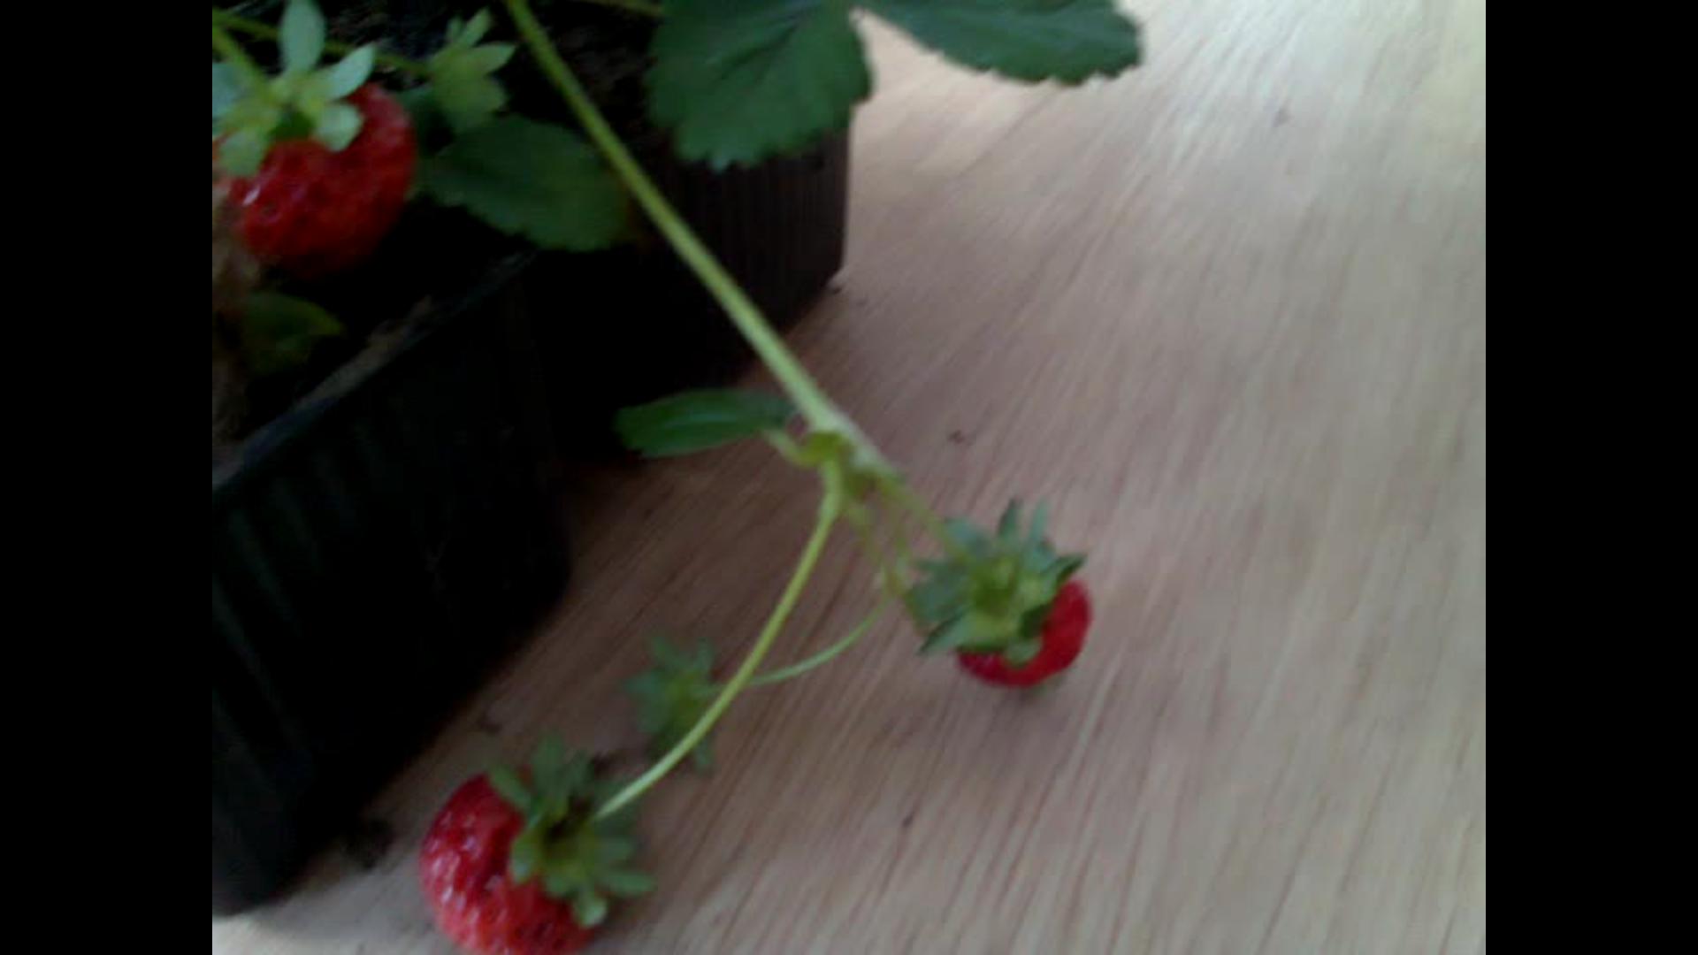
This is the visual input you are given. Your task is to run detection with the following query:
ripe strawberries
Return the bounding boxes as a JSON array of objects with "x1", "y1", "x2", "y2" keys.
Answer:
[
  {"x1": 398, "y1": 774, "x2": 675, "y2": 955},
  {"x1": 232, "y1": 50, "x2": 414, "y2": 239},
  {"x1": 937, "y1": 554, "x2": 1131, "y2": 684}
]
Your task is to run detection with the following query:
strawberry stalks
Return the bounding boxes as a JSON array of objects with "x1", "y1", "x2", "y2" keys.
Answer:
[
  {"x1": 182, "y1": 1, "x2": 369, "y2": 149},
  {"x1": 558, "y1": 710, "x2": 708, "y2": 877},
  {"x1": 885, "y1": 502, "x2": 1032, "y2": 624},
  {"x1": 690, "y1": 669, "x2": 813, "y2": 701}
]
